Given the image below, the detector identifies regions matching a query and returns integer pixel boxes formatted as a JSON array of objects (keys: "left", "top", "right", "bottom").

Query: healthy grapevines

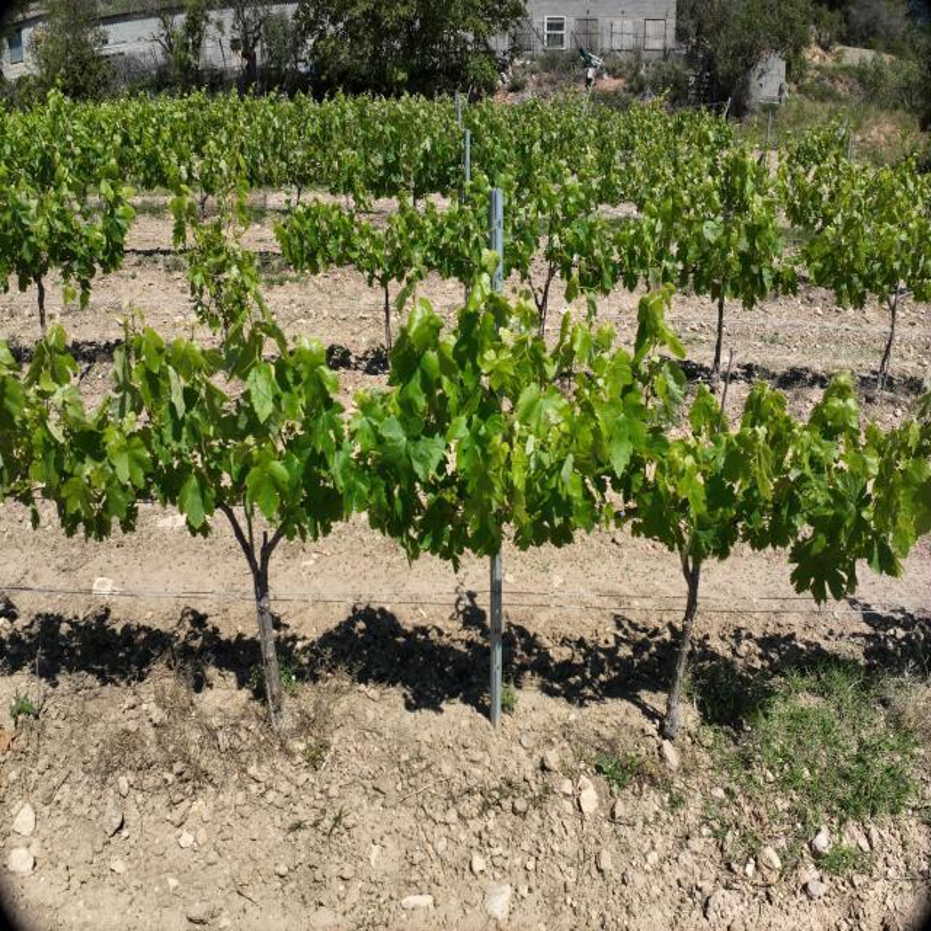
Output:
[
  {"left": 492, "top": 296, "right": 930, "bottom": 757},
  {"left": 0, "top": 273, "right": 503, "bottom": 748}
]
